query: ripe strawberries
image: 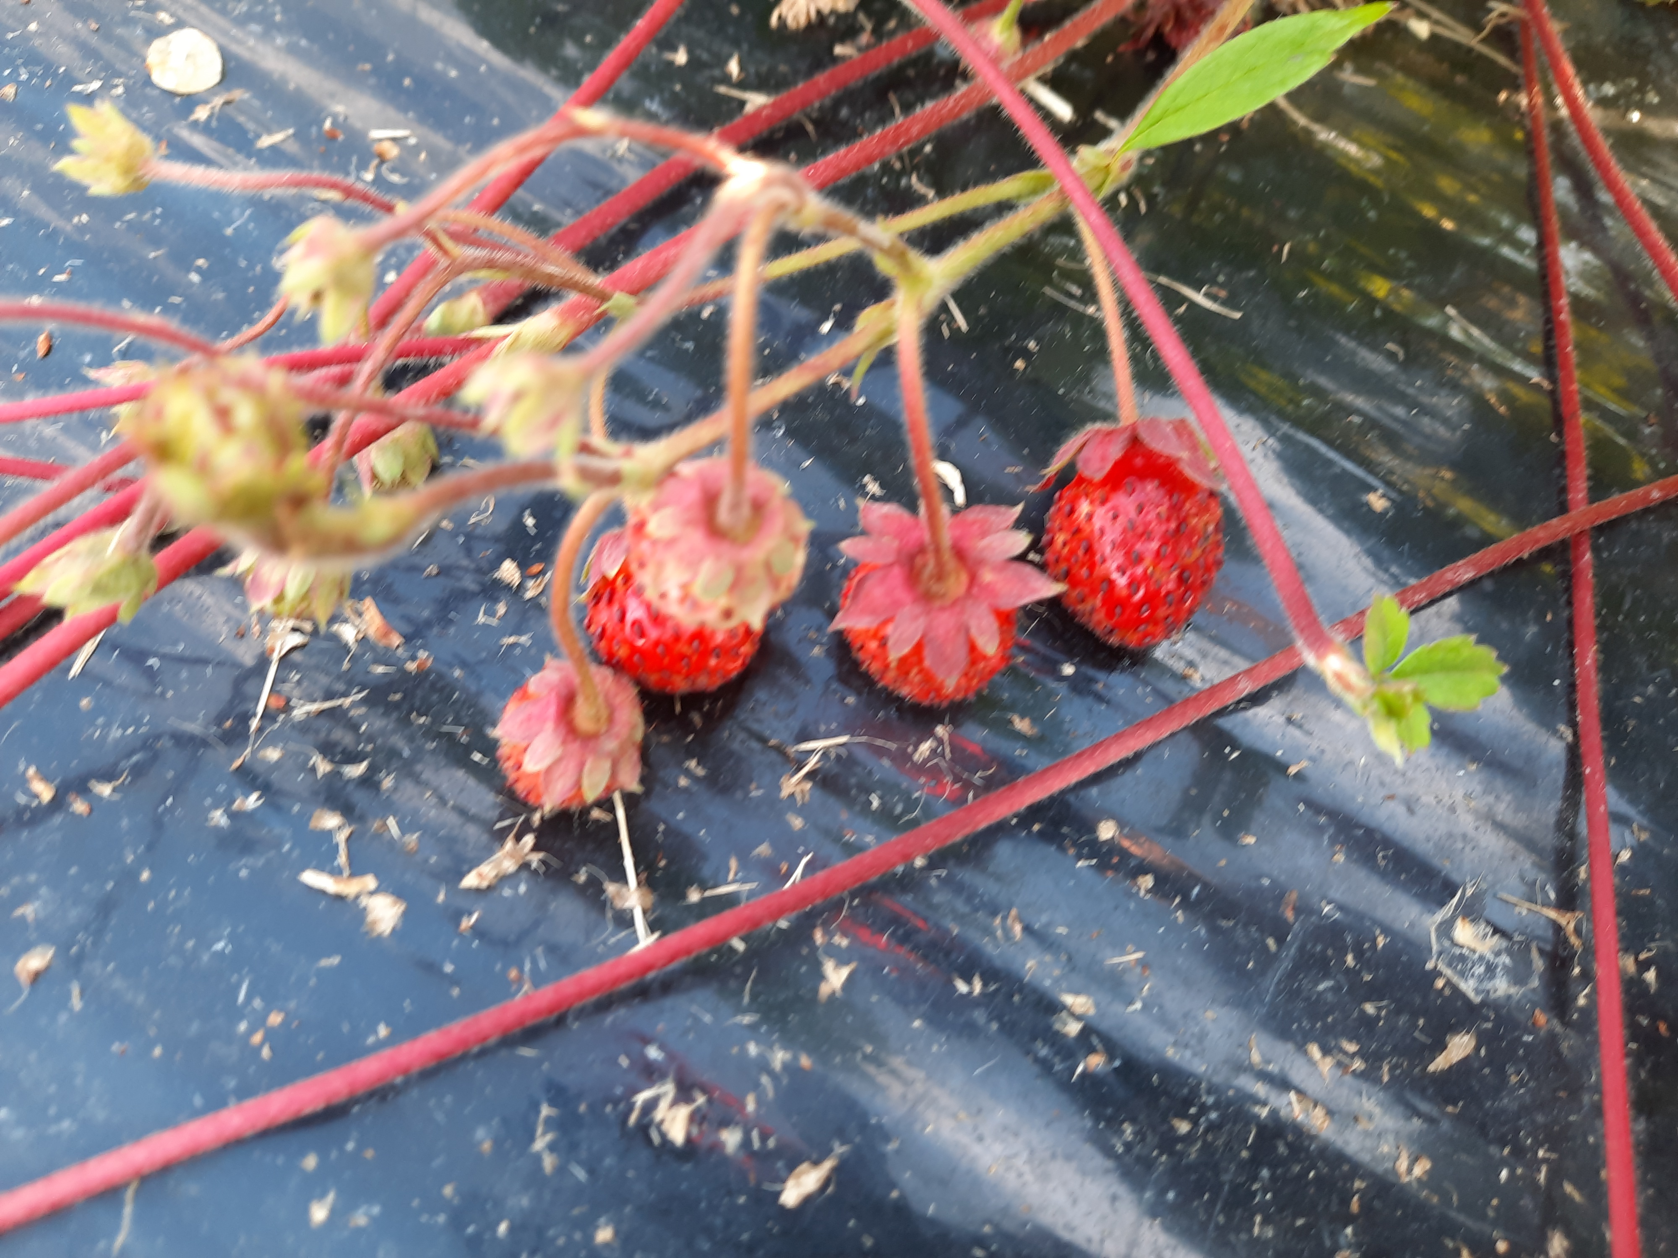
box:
[1040,442,1244,648]
[593,502,754,688]
[507,677,635,810]
[847,518,1000,702]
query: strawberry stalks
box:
[896,274,966,615]
[1074,219,1134,507]
[541,499,615,759]
[684,198,790,553]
